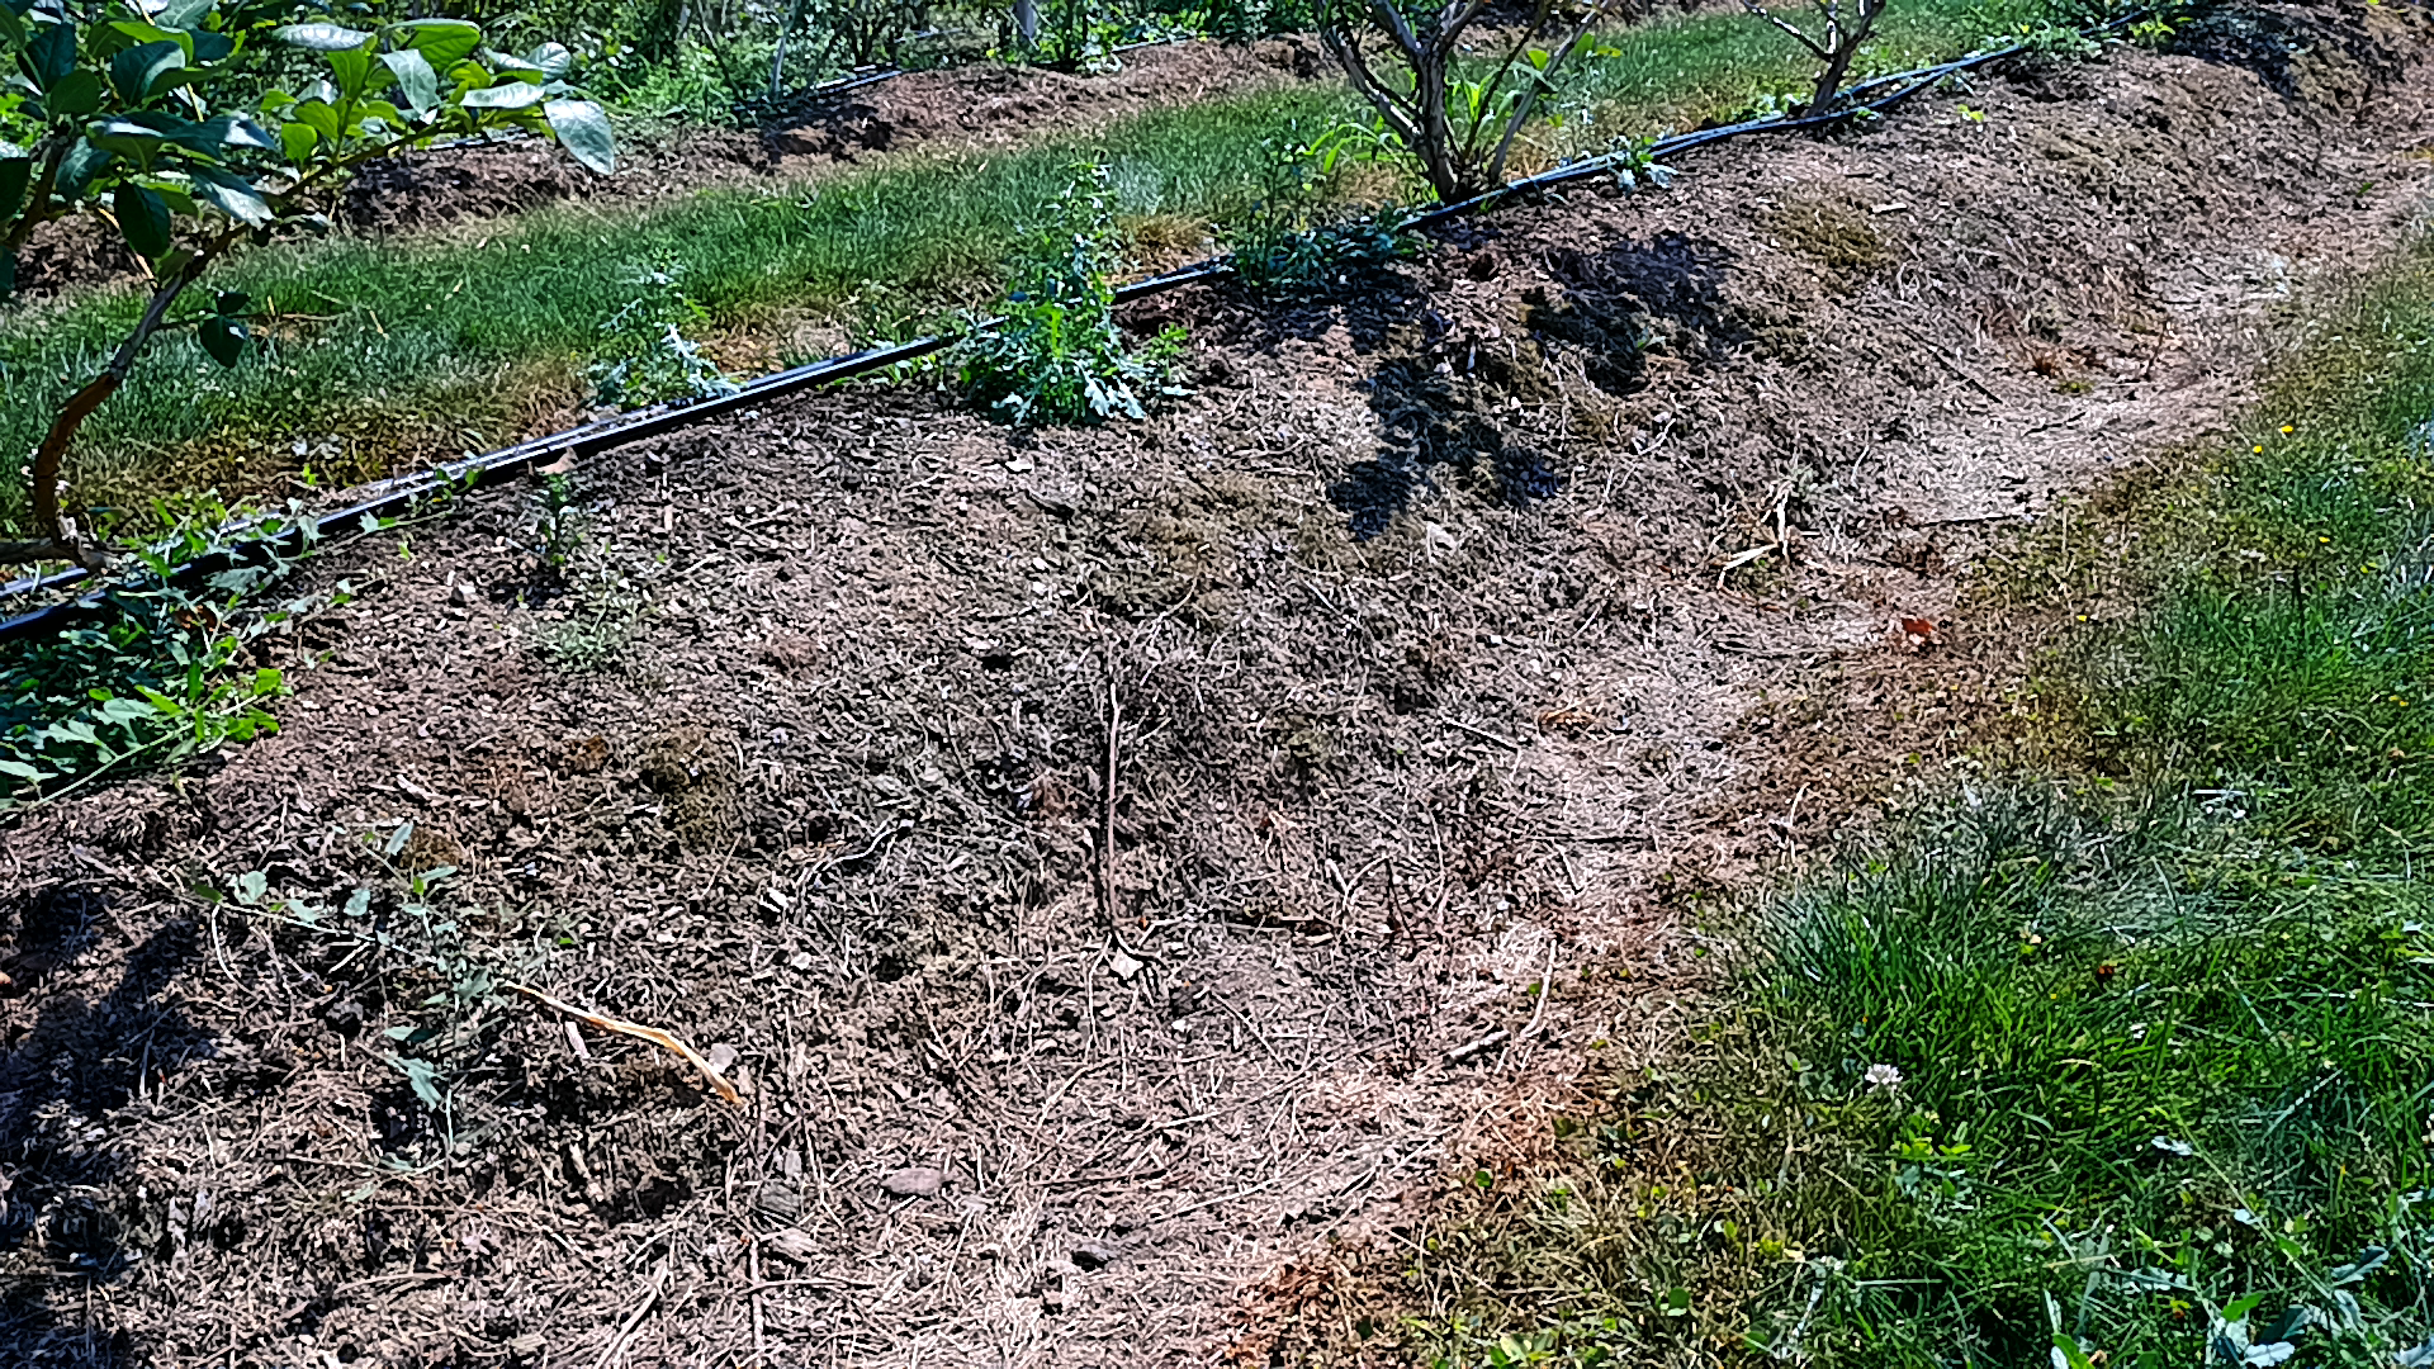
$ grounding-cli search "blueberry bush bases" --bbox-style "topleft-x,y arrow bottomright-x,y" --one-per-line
1342,56 -> 1553,238
1787,6 -> 1883,154
713,32 -> 851,132
0,471 -> 126,777
1012,11 -> 1120,84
